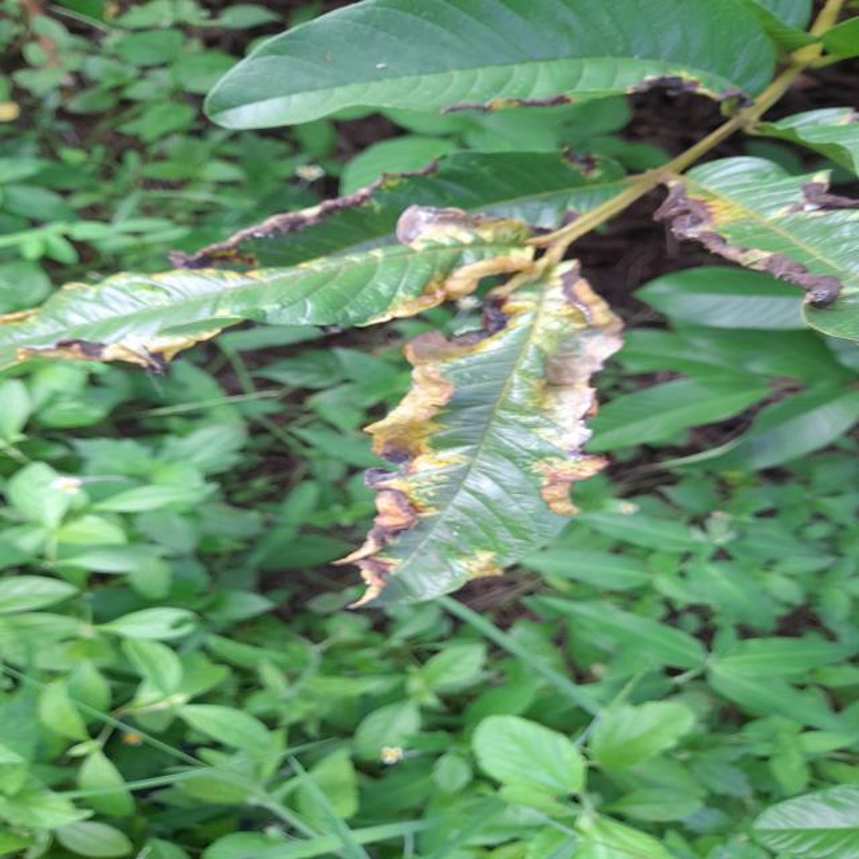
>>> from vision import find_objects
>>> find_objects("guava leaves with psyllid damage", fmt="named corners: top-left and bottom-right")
top-left (9, 200), bottom-right (584, 372)
top-left (357, 263), bottom-right (669, 621)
